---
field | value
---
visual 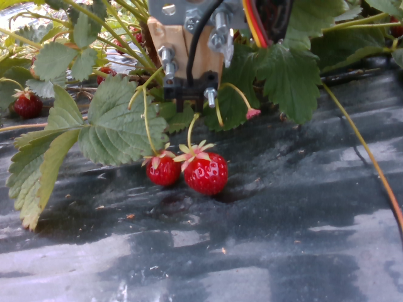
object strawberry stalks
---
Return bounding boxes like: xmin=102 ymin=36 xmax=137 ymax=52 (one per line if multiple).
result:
xmin=187 ymin=112 xmax=201 ymax=167
xmin=138 ymin=89 xmax=162 ymax=165
xmin=1 ymin=77 xmax=28 ymax=99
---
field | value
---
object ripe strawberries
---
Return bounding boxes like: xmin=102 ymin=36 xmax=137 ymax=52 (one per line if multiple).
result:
xmin=184 ymin=152 xmax=228 ymax=195
xmin=148 ymin=152 xmax=180 ymax=188
xmin=13 ymin=91 xmax=41 ymax=115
